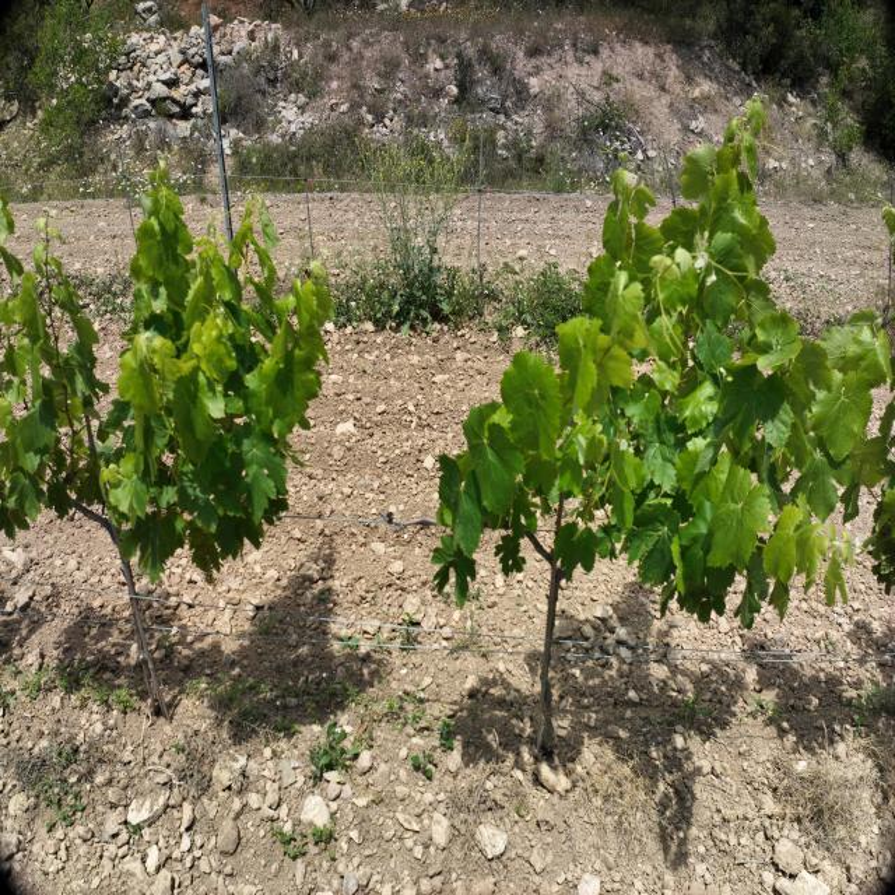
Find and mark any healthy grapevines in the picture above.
[0,171,344,734]
[418,119,888,785]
